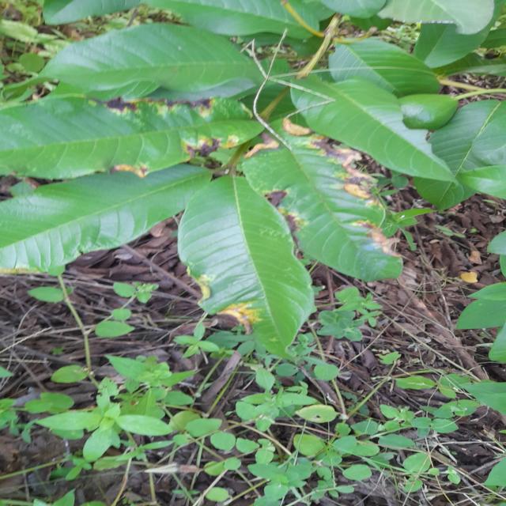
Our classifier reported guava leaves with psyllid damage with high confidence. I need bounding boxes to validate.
[179,171,324,369]
[244,110,412,286]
